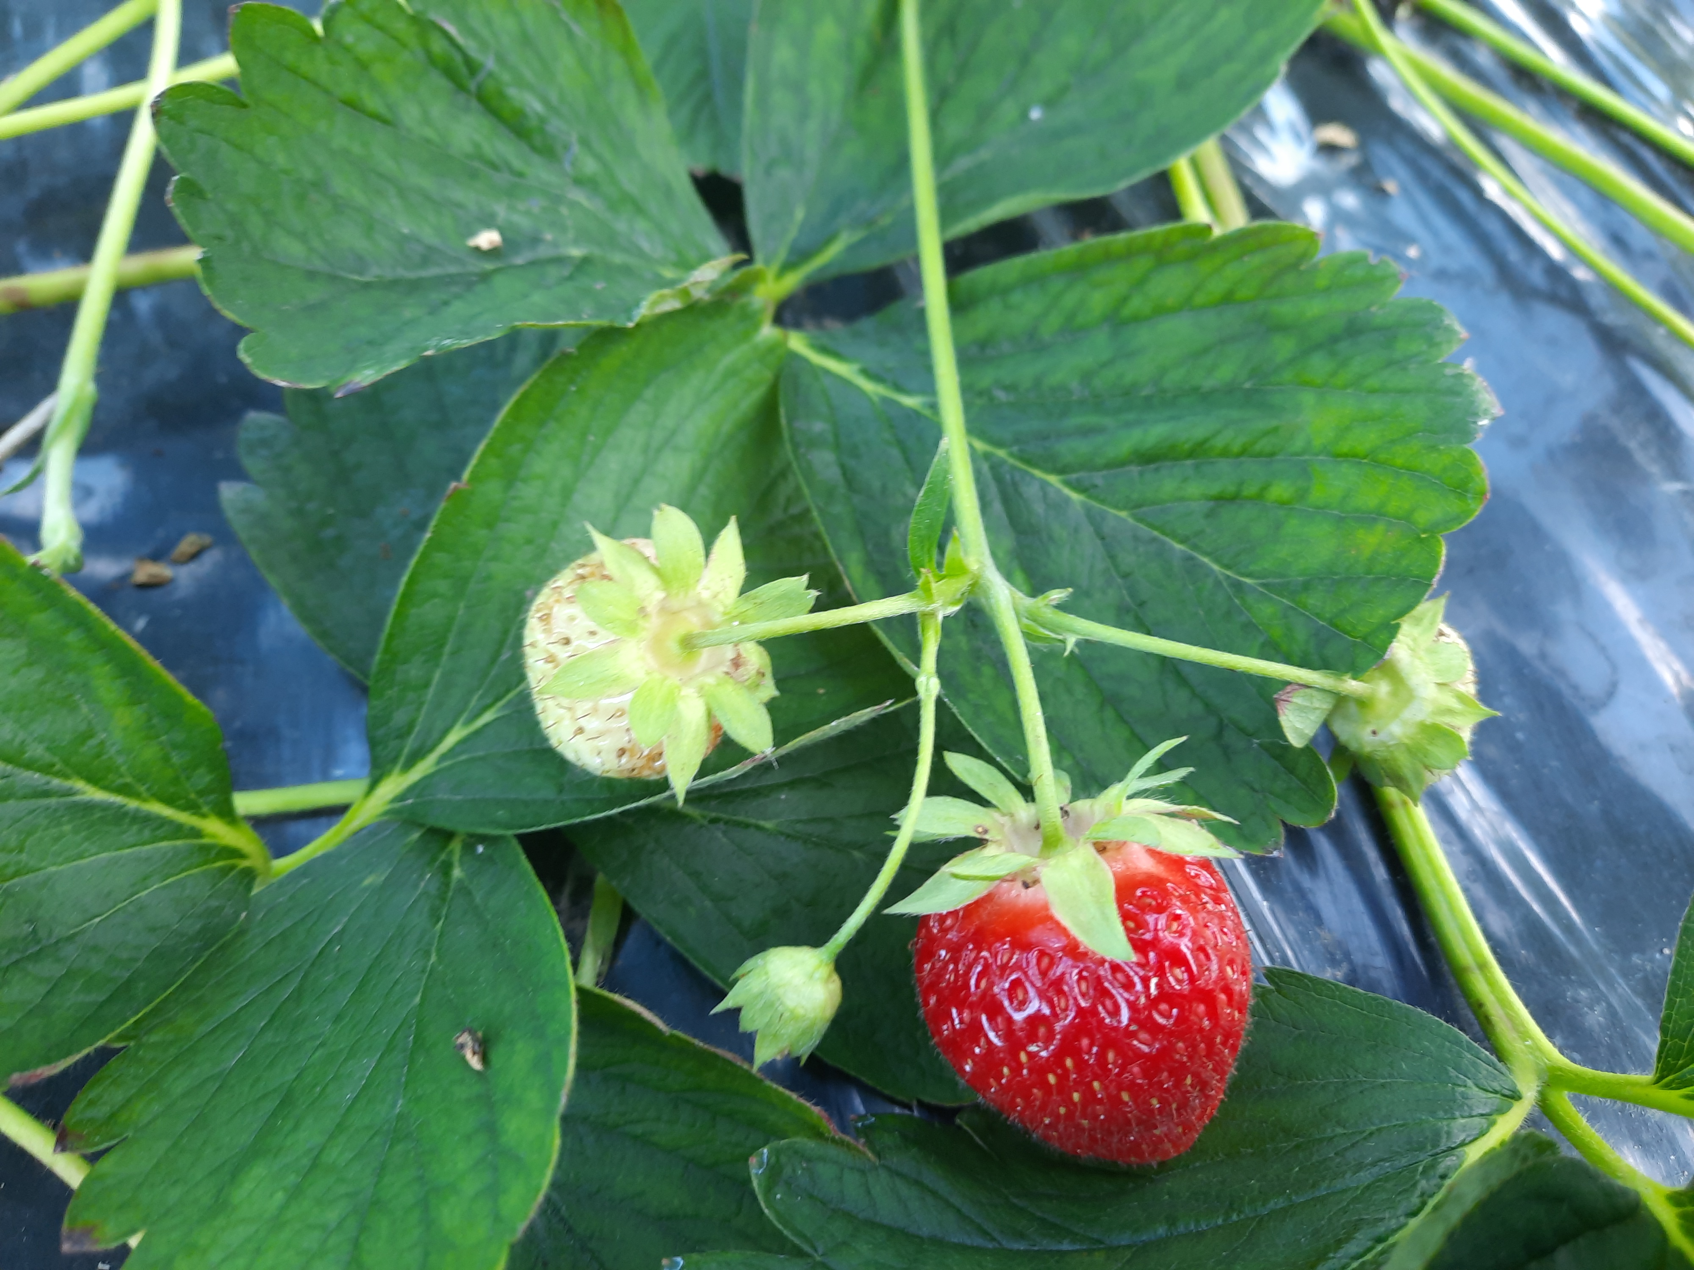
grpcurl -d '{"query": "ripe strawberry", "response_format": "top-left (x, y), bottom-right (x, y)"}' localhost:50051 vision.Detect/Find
top-left (920, 779), bottom-right (1253, 1158)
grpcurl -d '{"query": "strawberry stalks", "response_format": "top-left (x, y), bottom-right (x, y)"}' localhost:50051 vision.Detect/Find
top-left (1098, 601), bottom-right (1412, 722)
top-left (964, 552), bottom-right (1090, 903)
top-left (646, 569), bottom-right (984, 654)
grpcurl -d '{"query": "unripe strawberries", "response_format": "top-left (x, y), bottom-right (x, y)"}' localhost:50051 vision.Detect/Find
top-left (524, 548), bottom-right (769, 768)
top-left (1331, 612), bottom-right (1507, 764)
